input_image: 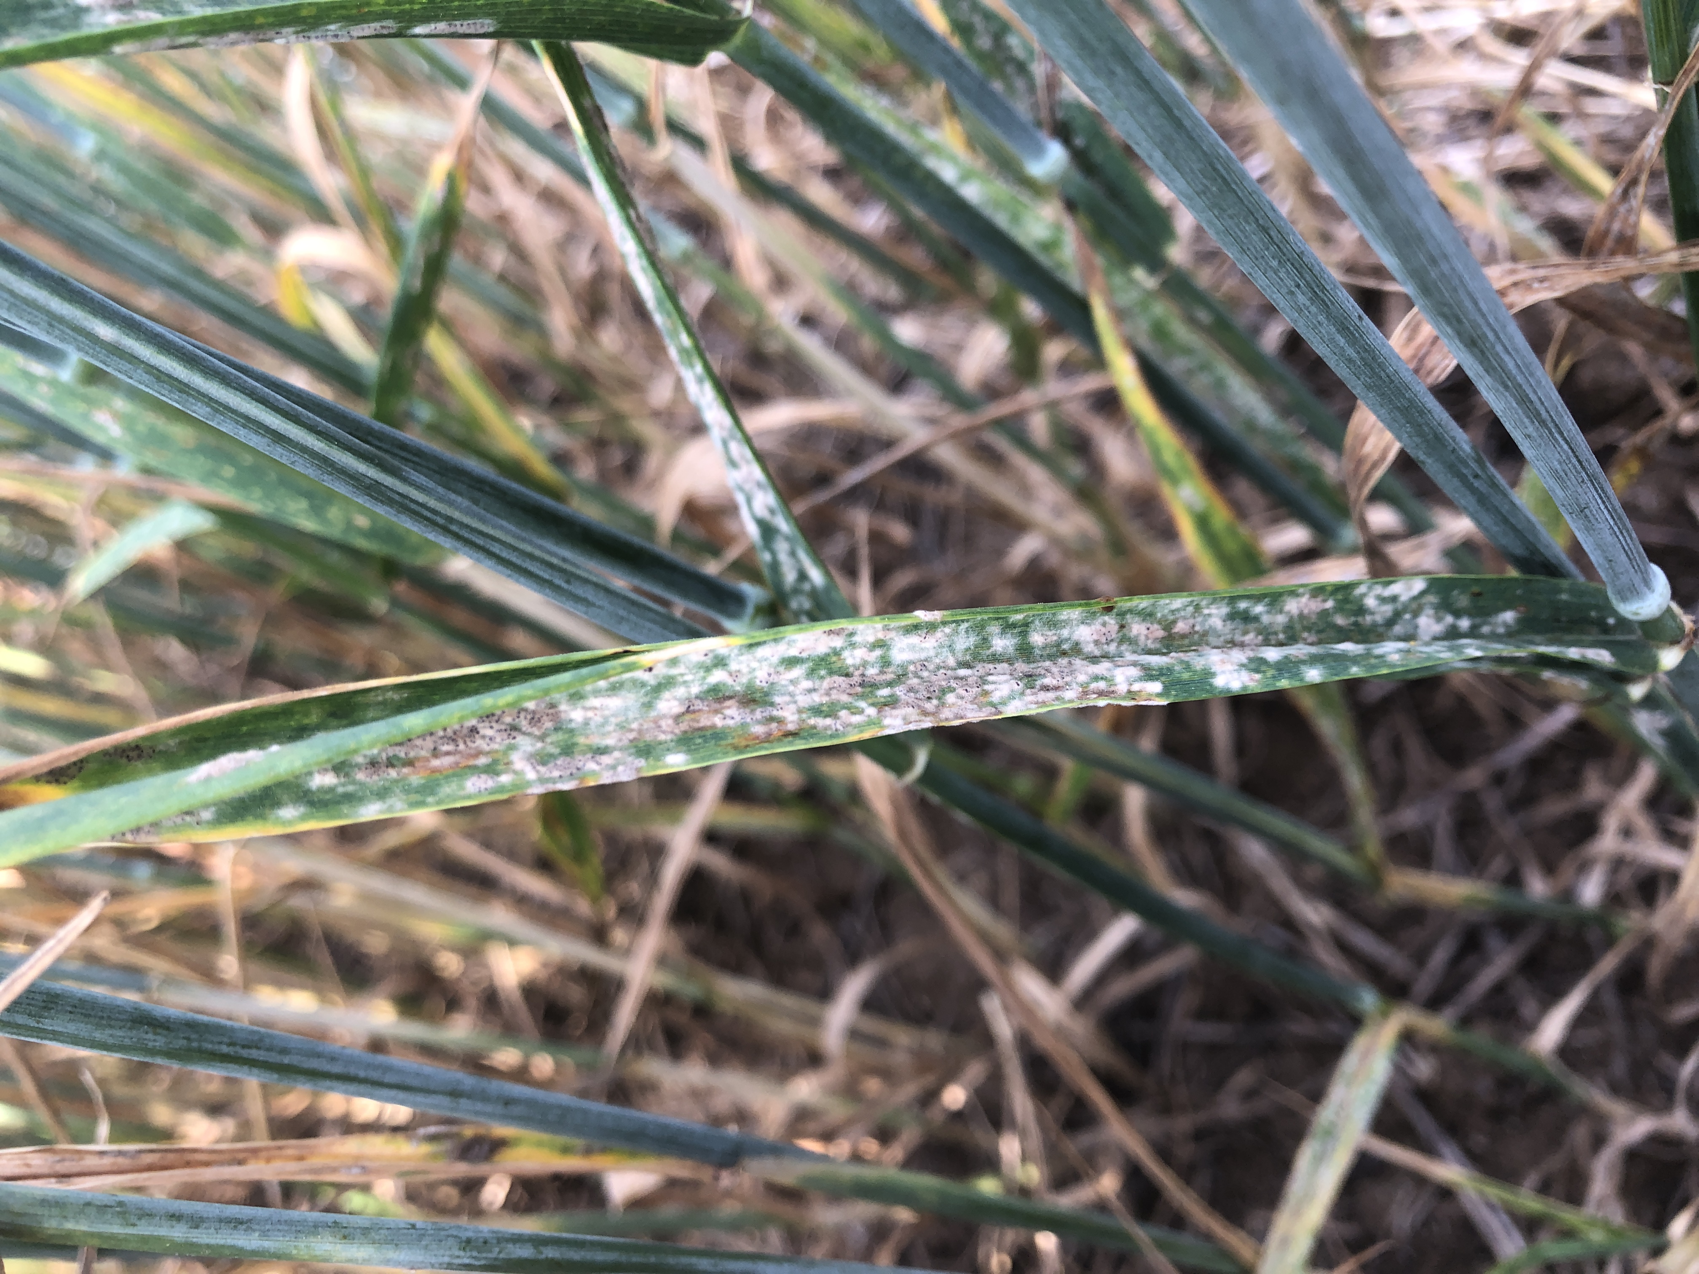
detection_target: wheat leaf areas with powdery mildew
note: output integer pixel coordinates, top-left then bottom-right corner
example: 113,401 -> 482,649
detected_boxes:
844,0 -> 1396,509
113,553 -> 1588,867
21,343 -> 420,534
